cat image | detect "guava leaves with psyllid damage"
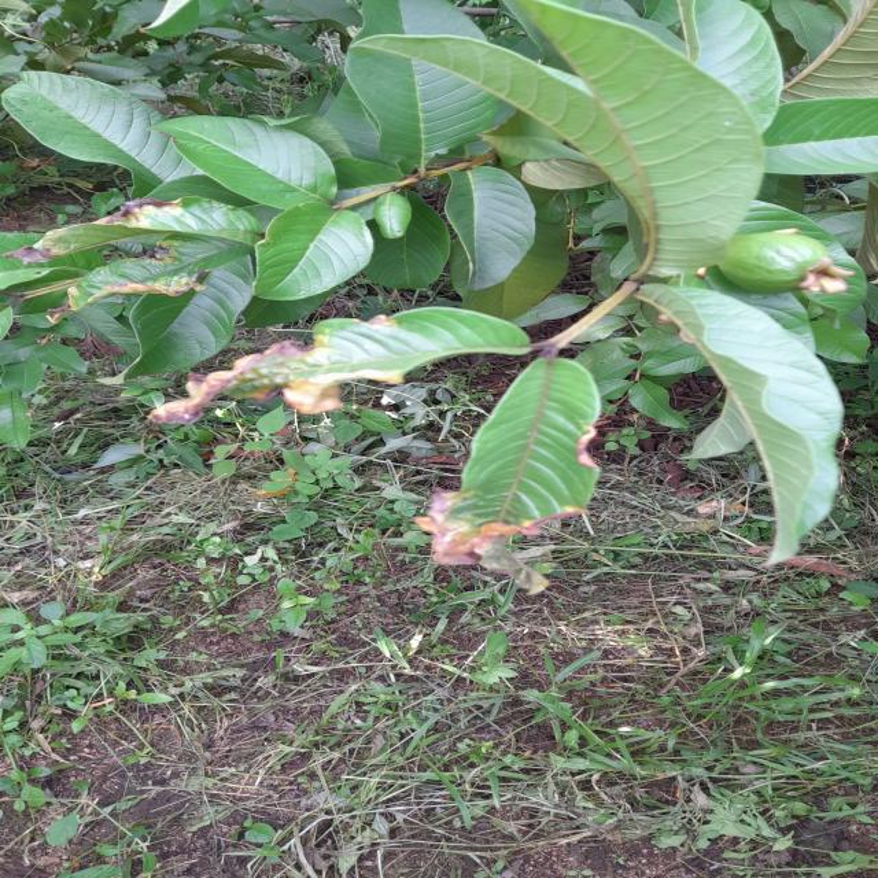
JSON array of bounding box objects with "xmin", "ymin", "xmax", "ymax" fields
[
  {"xmin": 75, "ymin": 306, "xmax": 560, "ymax": 436},
  {"xmin": 391, "ymin": 346, "xmax": 633, "ymax": 578}
]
